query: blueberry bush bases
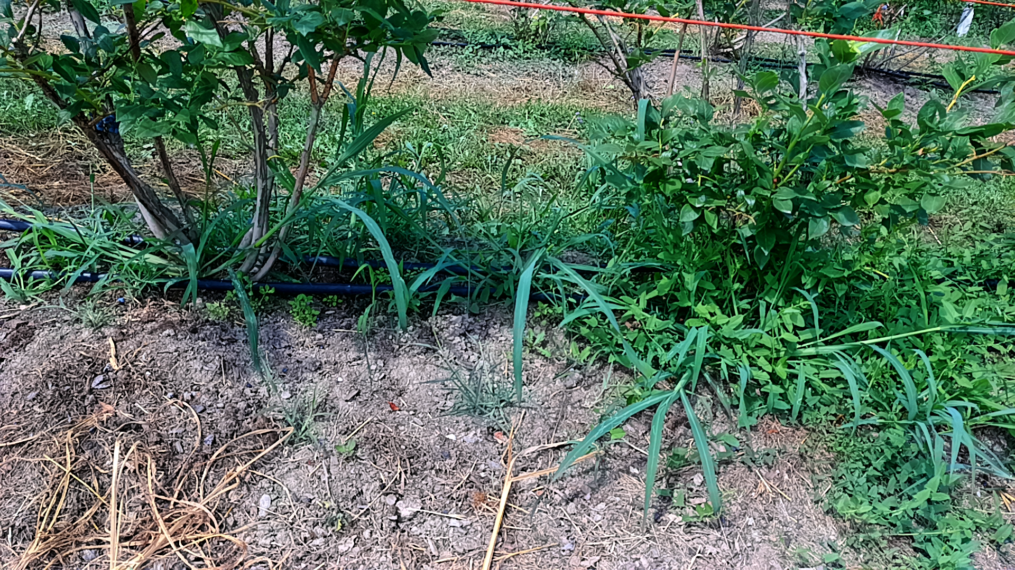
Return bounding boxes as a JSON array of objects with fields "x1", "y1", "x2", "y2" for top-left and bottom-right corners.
[
  {"x1": 504, "y1": 15, "x2": 565, "y2": 56},
  {"x1": 105, "y1": 158, "x2": 346, "y2": 321},
  {"x1": 591, "y1": 62, "x2": 879, "y2": 348}
]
